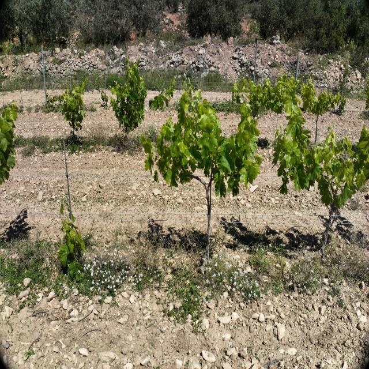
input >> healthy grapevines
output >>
[140,84,265,270]
[271,110,369,270]
[55,217,89,285]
